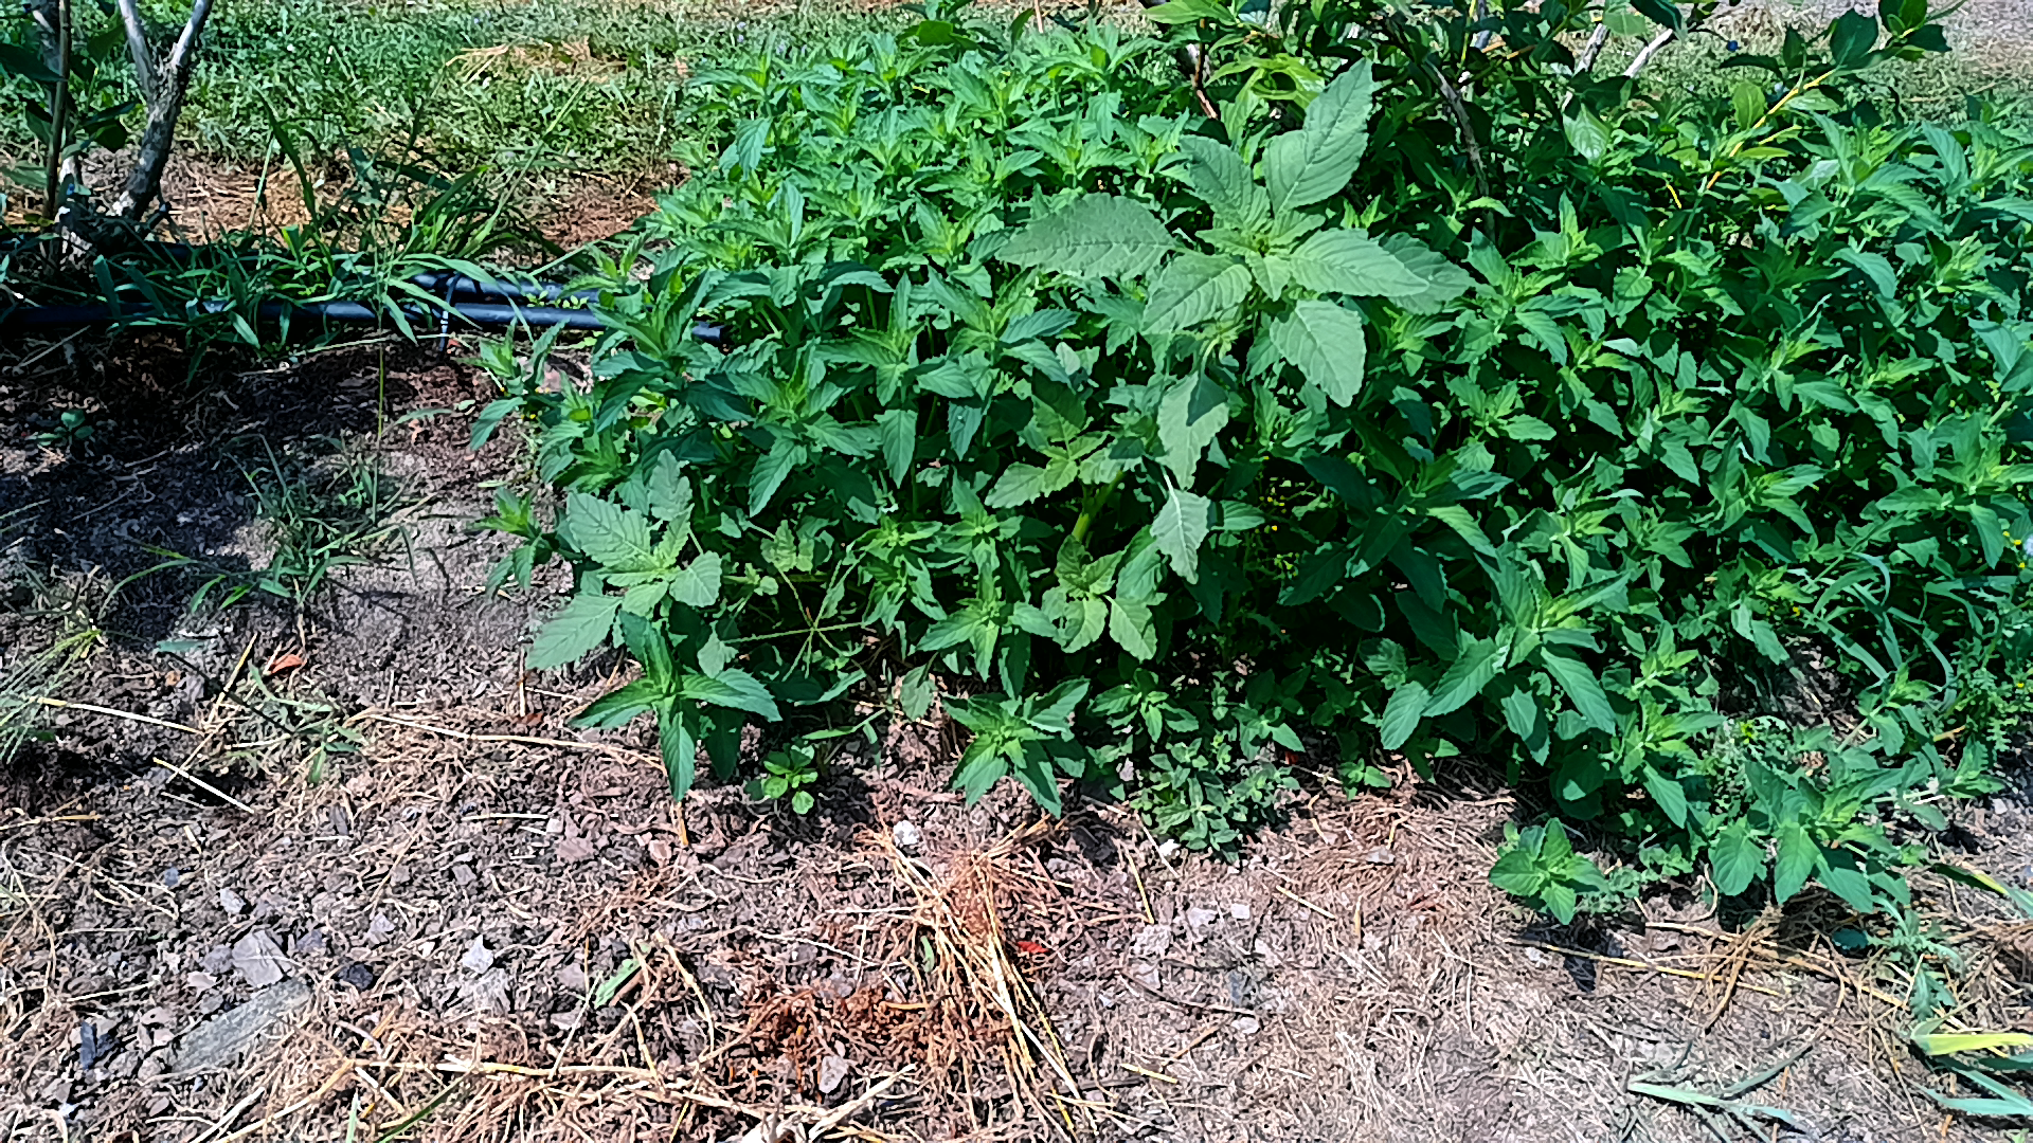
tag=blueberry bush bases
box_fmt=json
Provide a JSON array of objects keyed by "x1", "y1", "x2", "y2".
[
  {"x1": 1186, "y1": 4, "x2": 1658, "y2": 252},
  {"x1": 0, "y1": 37, "x2": 259, "y2": 424}
]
